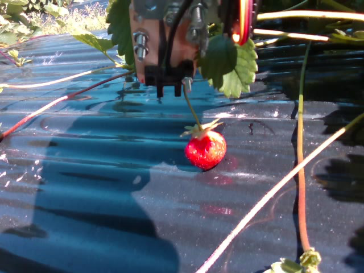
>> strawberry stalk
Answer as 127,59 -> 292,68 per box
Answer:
183,92 -> 204,143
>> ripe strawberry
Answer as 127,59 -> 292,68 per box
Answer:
184,129 -> 228,169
